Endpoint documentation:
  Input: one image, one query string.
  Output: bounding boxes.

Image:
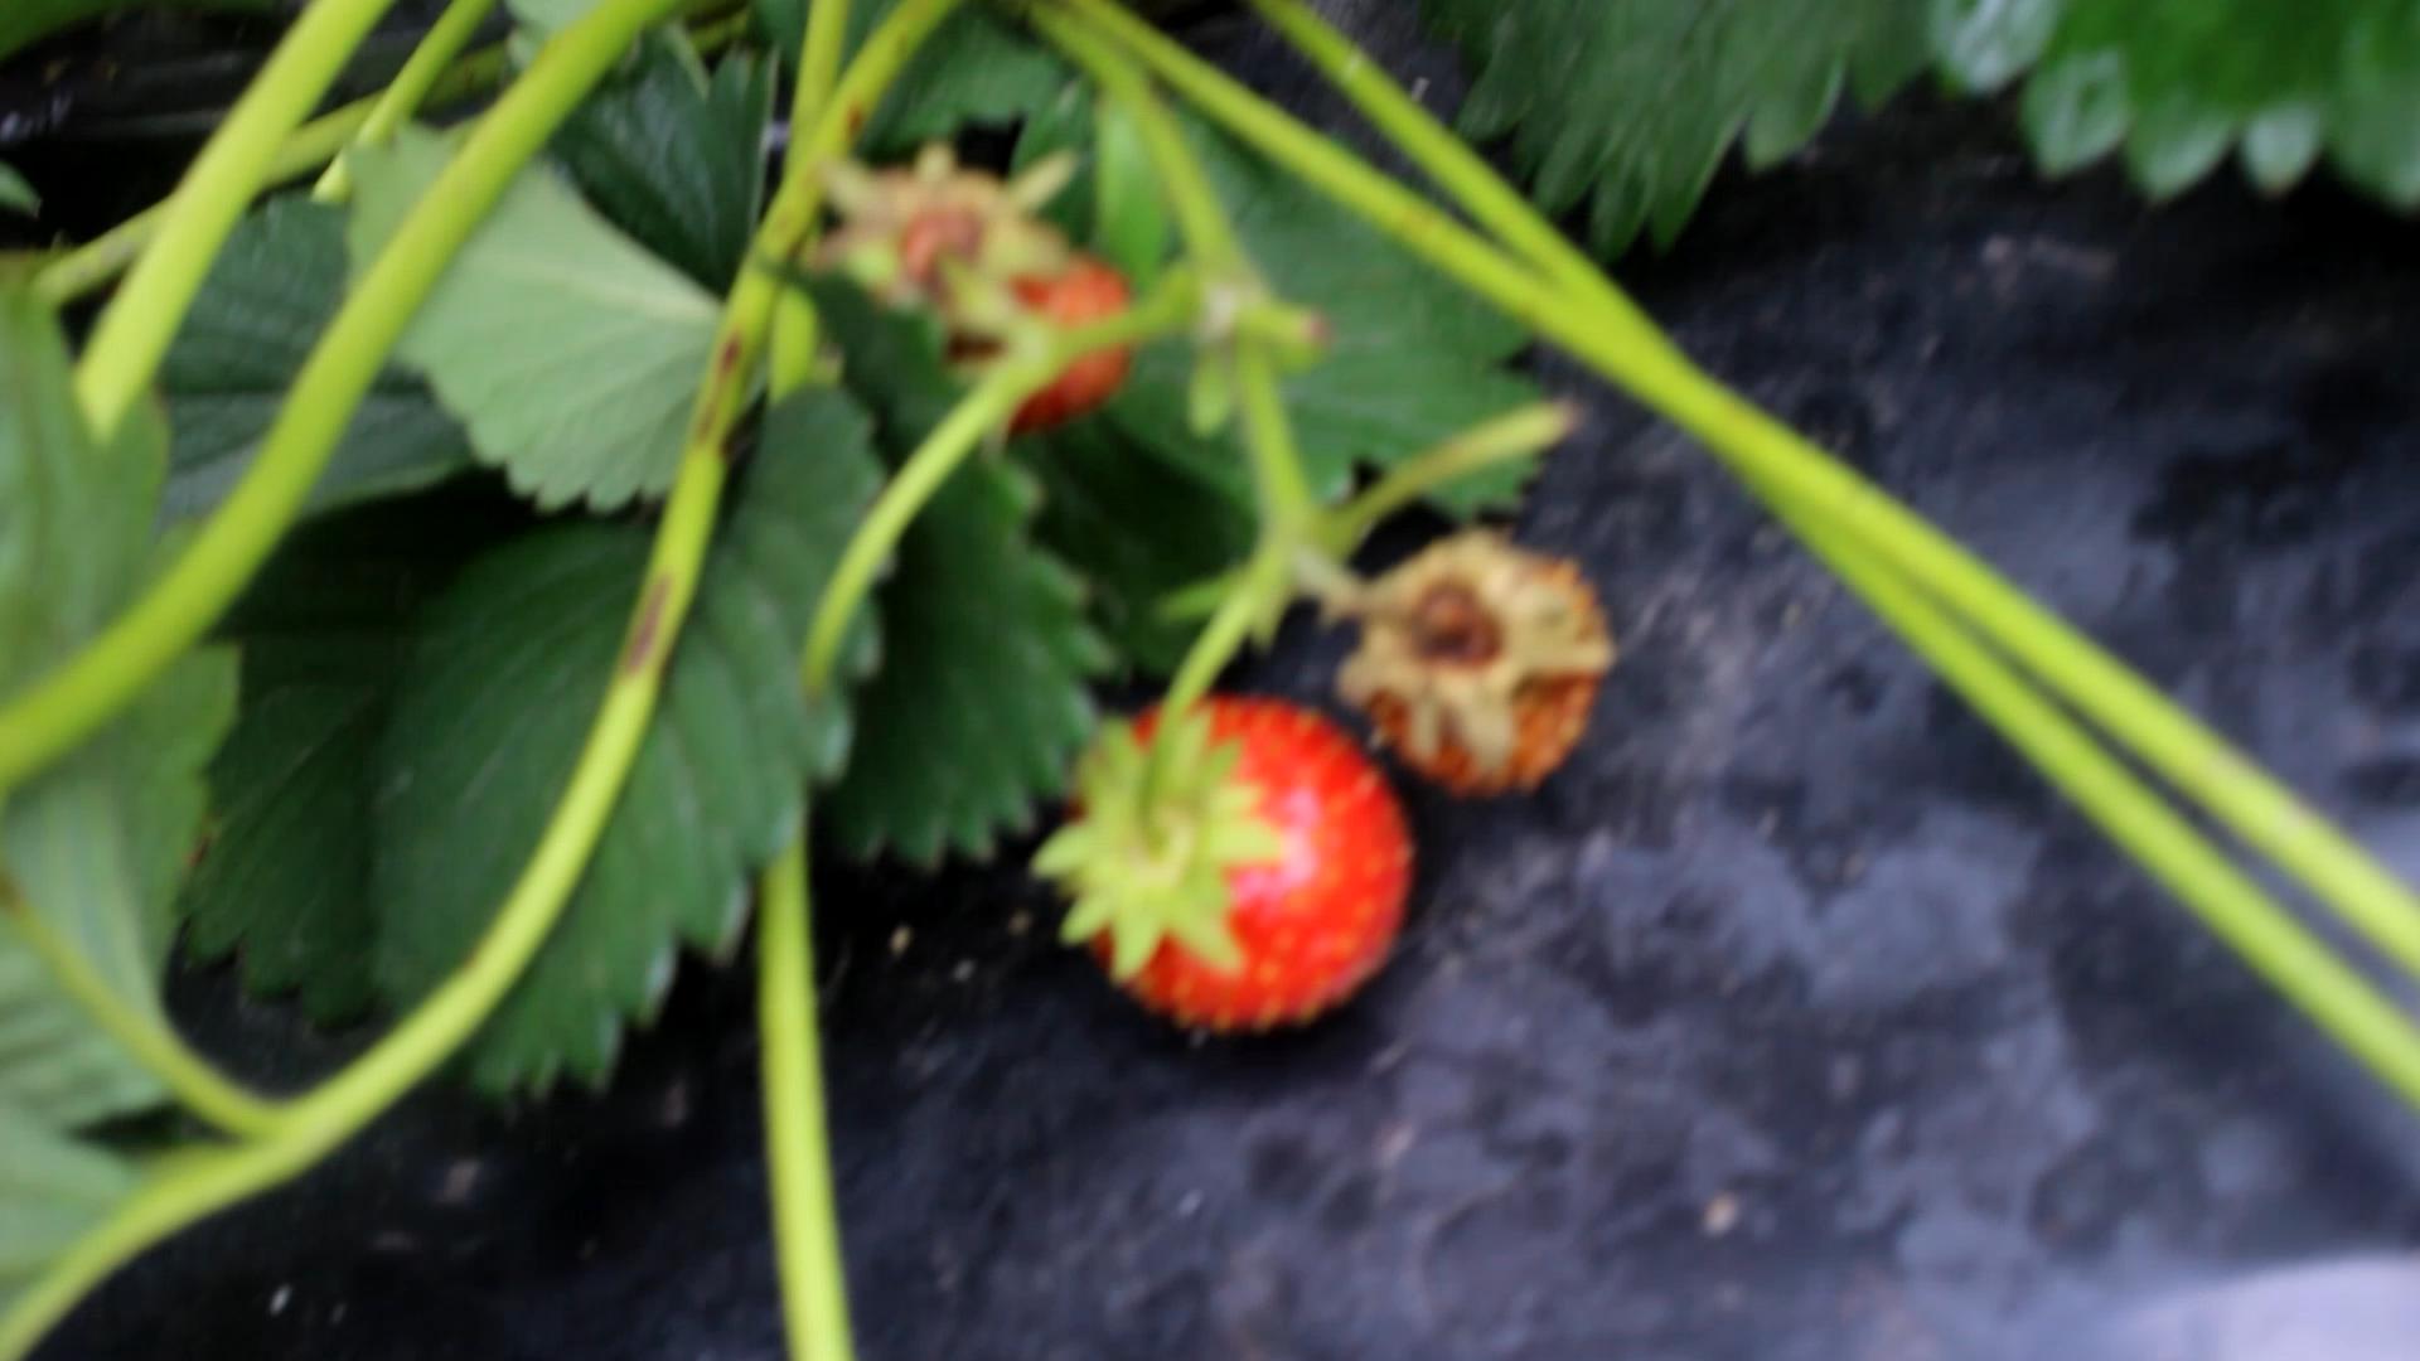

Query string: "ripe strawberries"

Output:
[954,251,1168,435]
[1066,693,1427,1042]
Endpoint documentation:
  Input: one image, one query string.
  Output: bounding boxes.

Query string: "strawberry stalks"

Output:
[913,214,1088,379]
[1129,537,1262,813]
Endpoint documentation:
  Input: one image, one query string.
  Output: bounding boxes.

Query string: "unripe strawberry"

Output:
[1348,527,1630,796]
